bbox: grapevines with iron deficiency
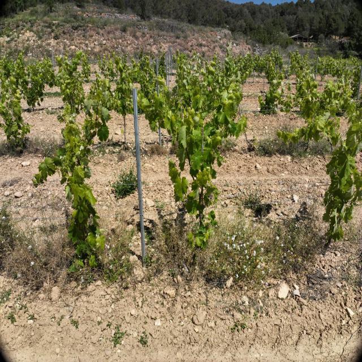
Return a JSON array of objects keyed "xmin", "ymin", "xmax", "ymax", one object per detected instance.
[
  {"xmin": 30, "ymin": 97, "xmax": 119, "ymax": 281},
  {"xmin": 144, "ymin": 70, "xmax": 249, "ymax": 259},
  {"xmin": 309, "ymin": 108, "xmax": 362, "ymax": 260}
]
